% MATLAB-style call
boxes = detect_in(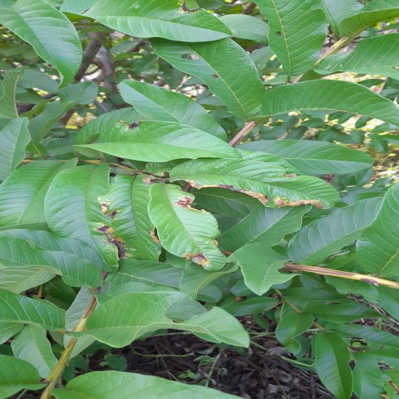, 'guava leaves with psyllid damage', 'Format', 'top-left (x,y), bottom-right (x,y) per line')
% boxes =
(169, 154), (348, 213)
(135, 182), (240, 273)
